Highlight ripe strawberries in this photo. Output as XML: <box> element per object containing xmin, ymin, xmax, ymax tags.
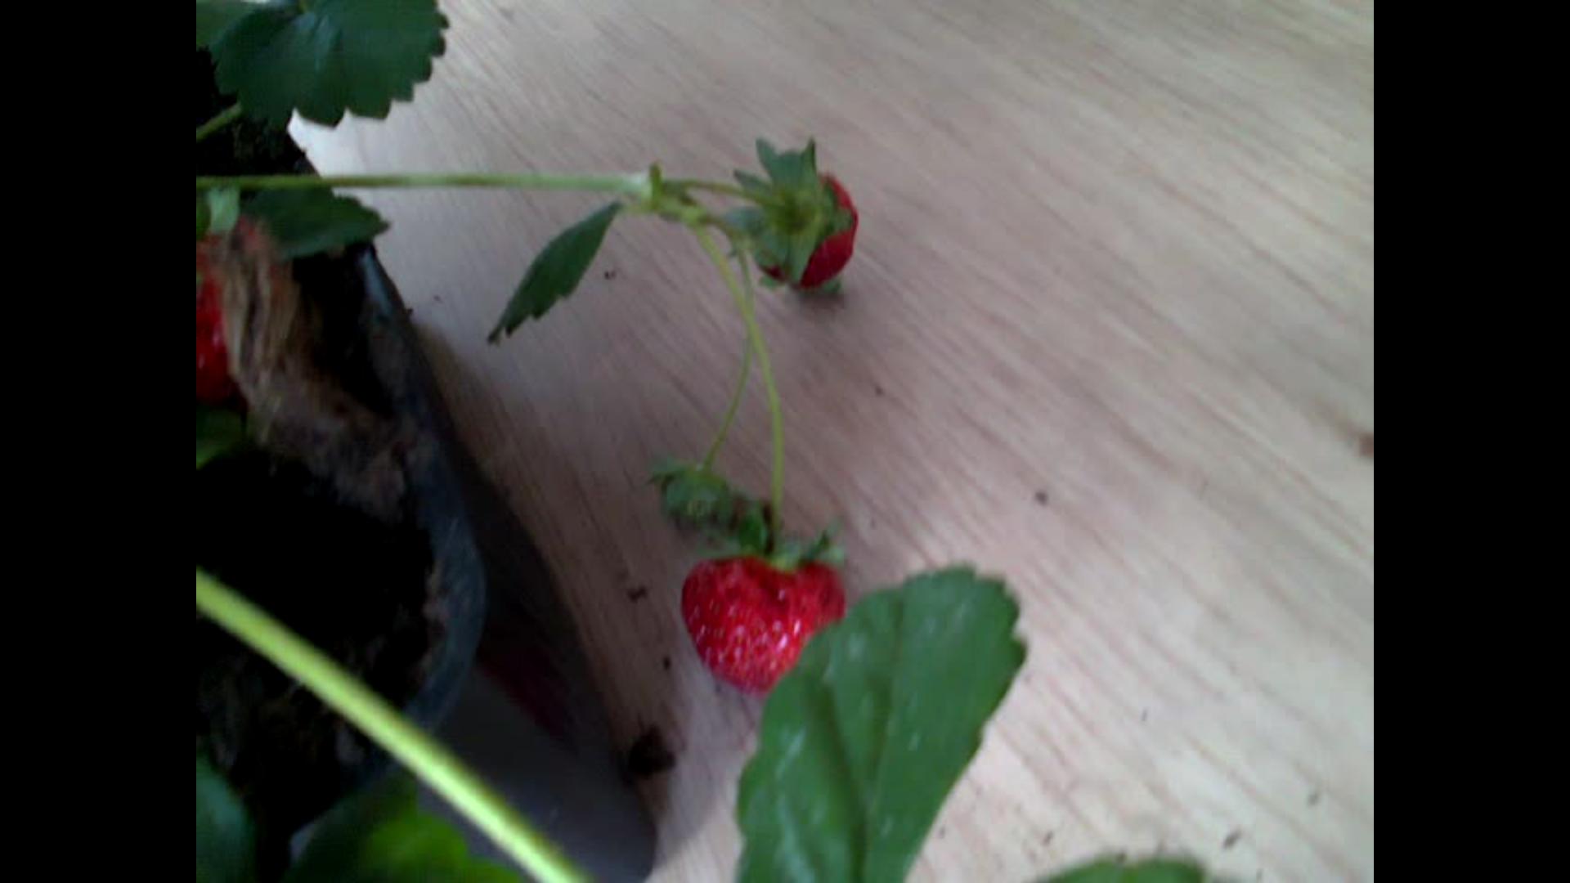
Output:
<box><xmin>747</xmin><ymin>180</ymin><xmax>859</xmax><ymax>289</ymax></box>
<box><xmin>682</xmin><ymin>555</ymin><xmax>843</xmax><ymax>697</ymax></box>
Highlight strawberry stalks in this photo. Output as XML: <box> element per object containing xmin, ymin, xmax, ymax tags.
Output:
<box><xmin>753</xmin><ymin>379</ymin><xmax>809</xmax><ymax>567</ymax></box>
<box><xmin>657</xmin><ymin>179</ymin><xmax>810</xmax><ymax>220</ymax></box>
<box><xmin>700</xmin><ymin>386</ymin><xmax>738</xmax><ymax>482</ymax></box>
